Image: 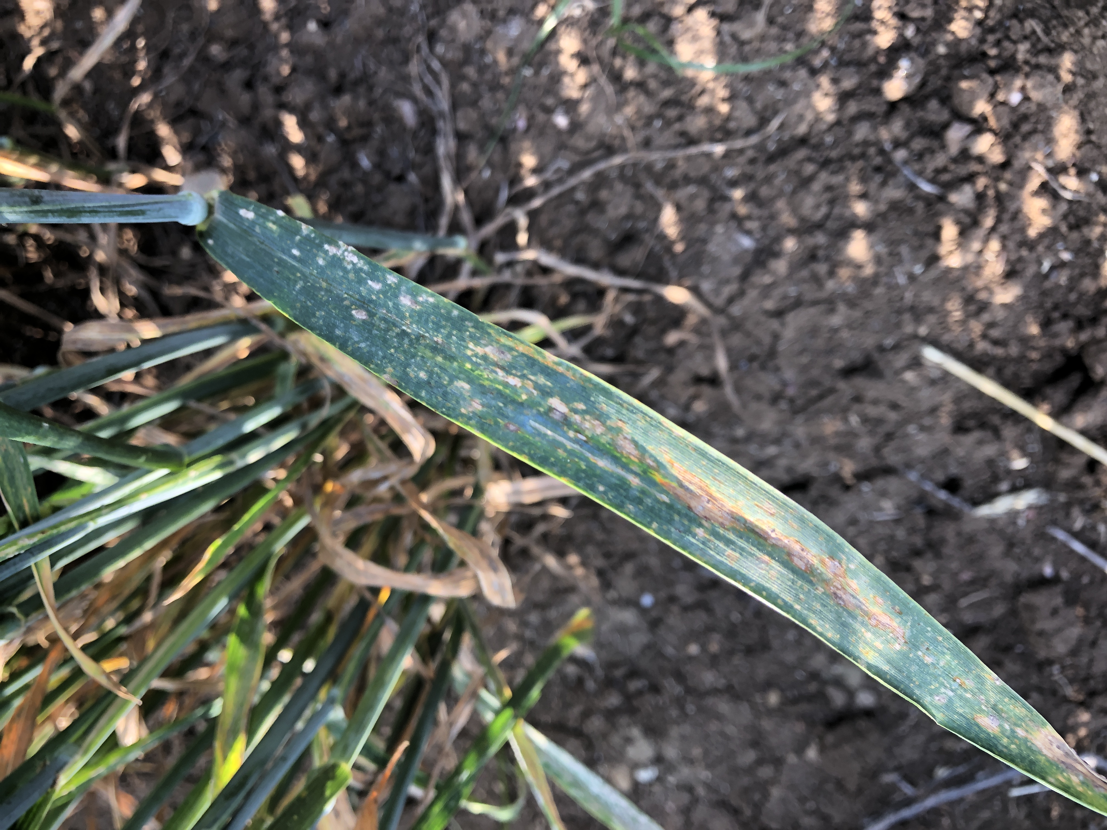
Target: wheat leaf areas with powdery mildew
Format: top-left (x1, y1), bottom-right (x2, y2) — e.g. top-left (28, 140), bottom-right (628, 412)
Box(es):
top-left (226, 177), bottom-right (1093, 807)
top-left (527, 710), bottom-right (666, 830)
